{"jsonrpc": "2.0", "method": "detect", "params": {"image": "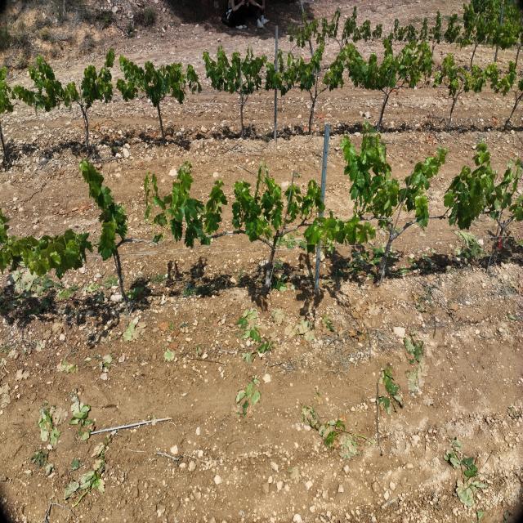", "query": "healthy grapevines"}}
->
[184,162,352,308]
[0,169,182,321]
[340,136,449,301]
[453,141,523,281]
